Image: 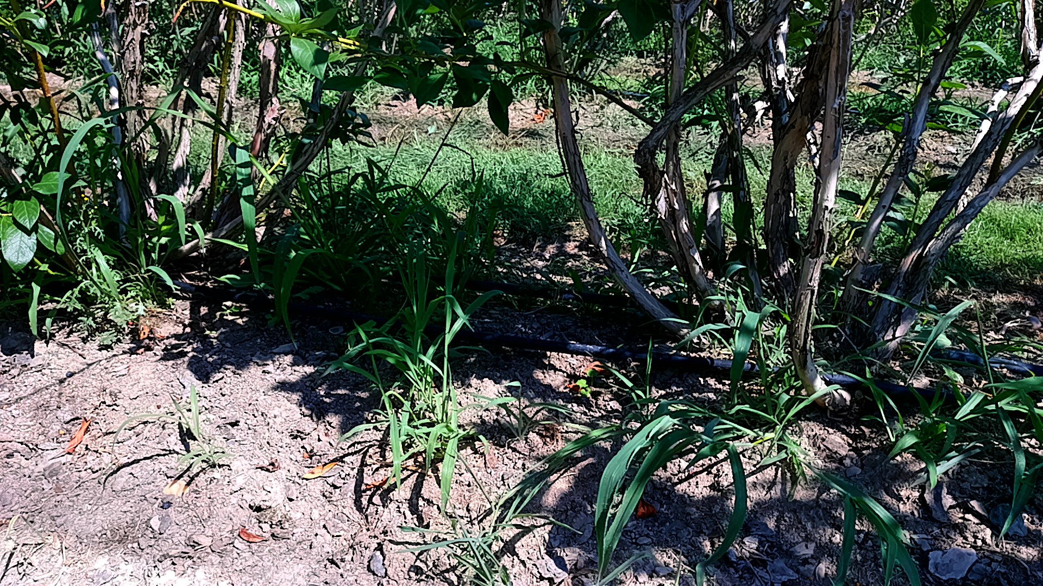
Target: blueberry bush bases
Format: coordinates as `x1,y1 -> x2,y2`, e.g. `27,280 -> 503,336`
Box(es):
30,121 -> 304,337
607,181 -> 991,468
